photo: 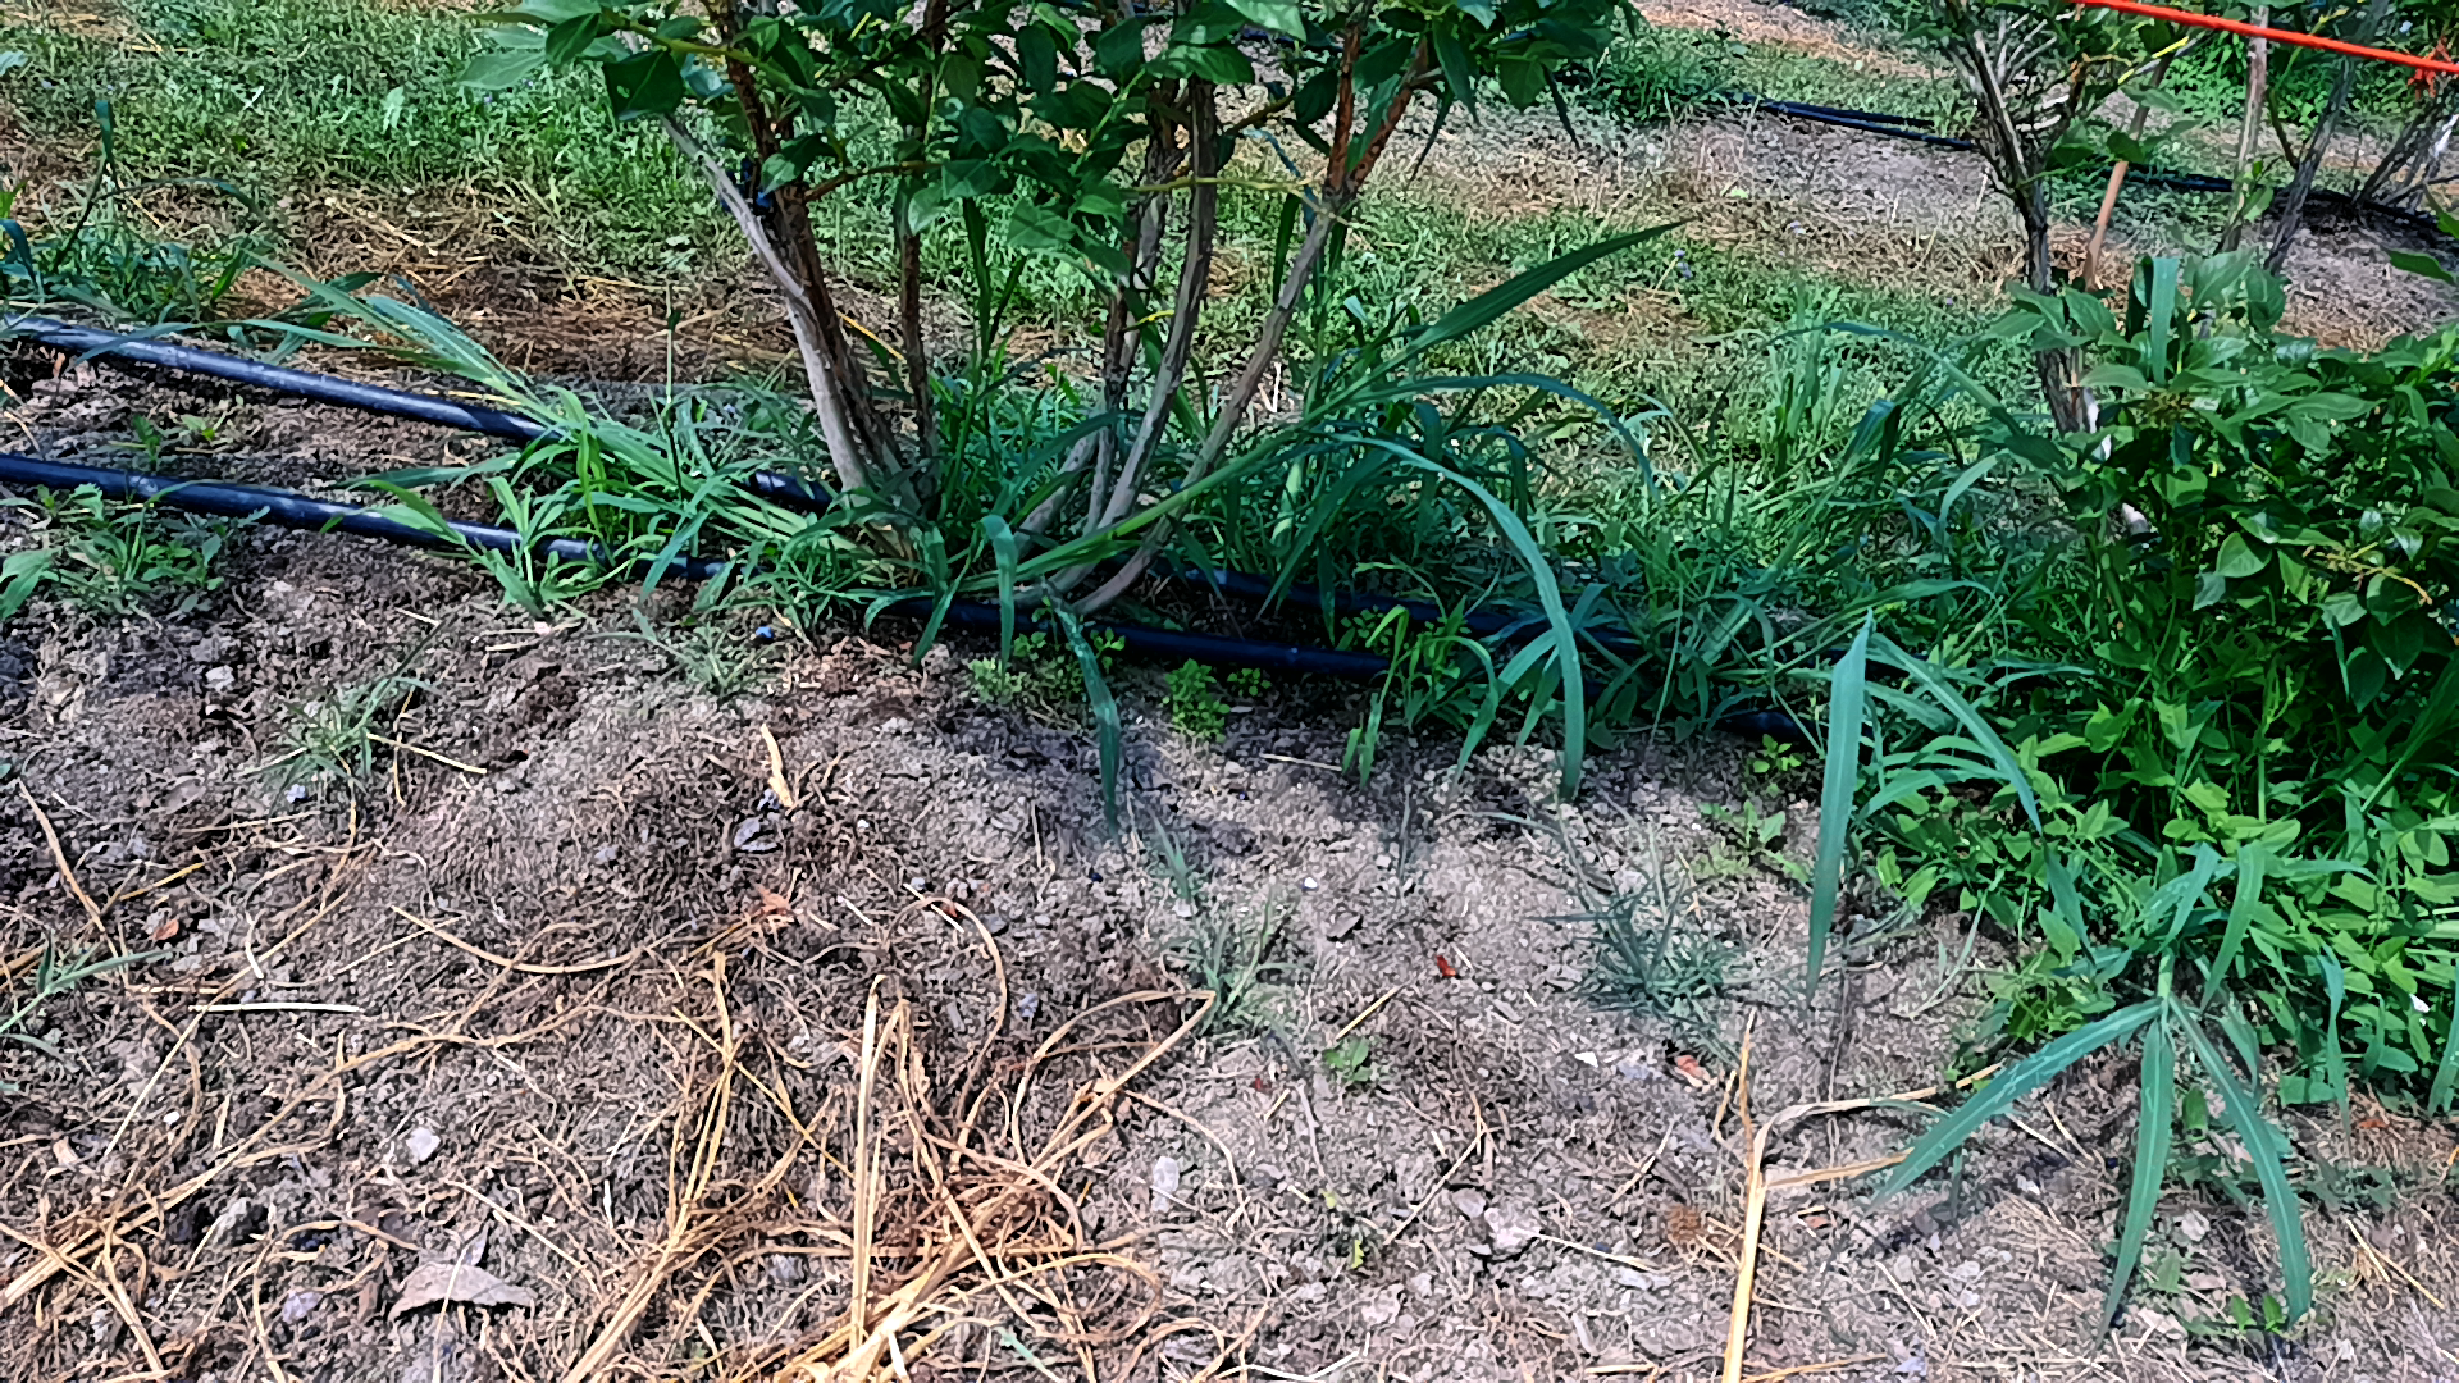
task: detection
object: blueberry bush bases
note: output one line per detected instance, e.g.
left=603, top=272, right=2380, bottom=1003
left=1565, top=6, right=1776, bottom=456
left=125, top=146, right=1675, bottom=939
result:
left=726, top=287, right=1349, bottom=708
left=2226, top=87, right=2451, bottom=257
left=1962, top=242, right=2438, bottom=1010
